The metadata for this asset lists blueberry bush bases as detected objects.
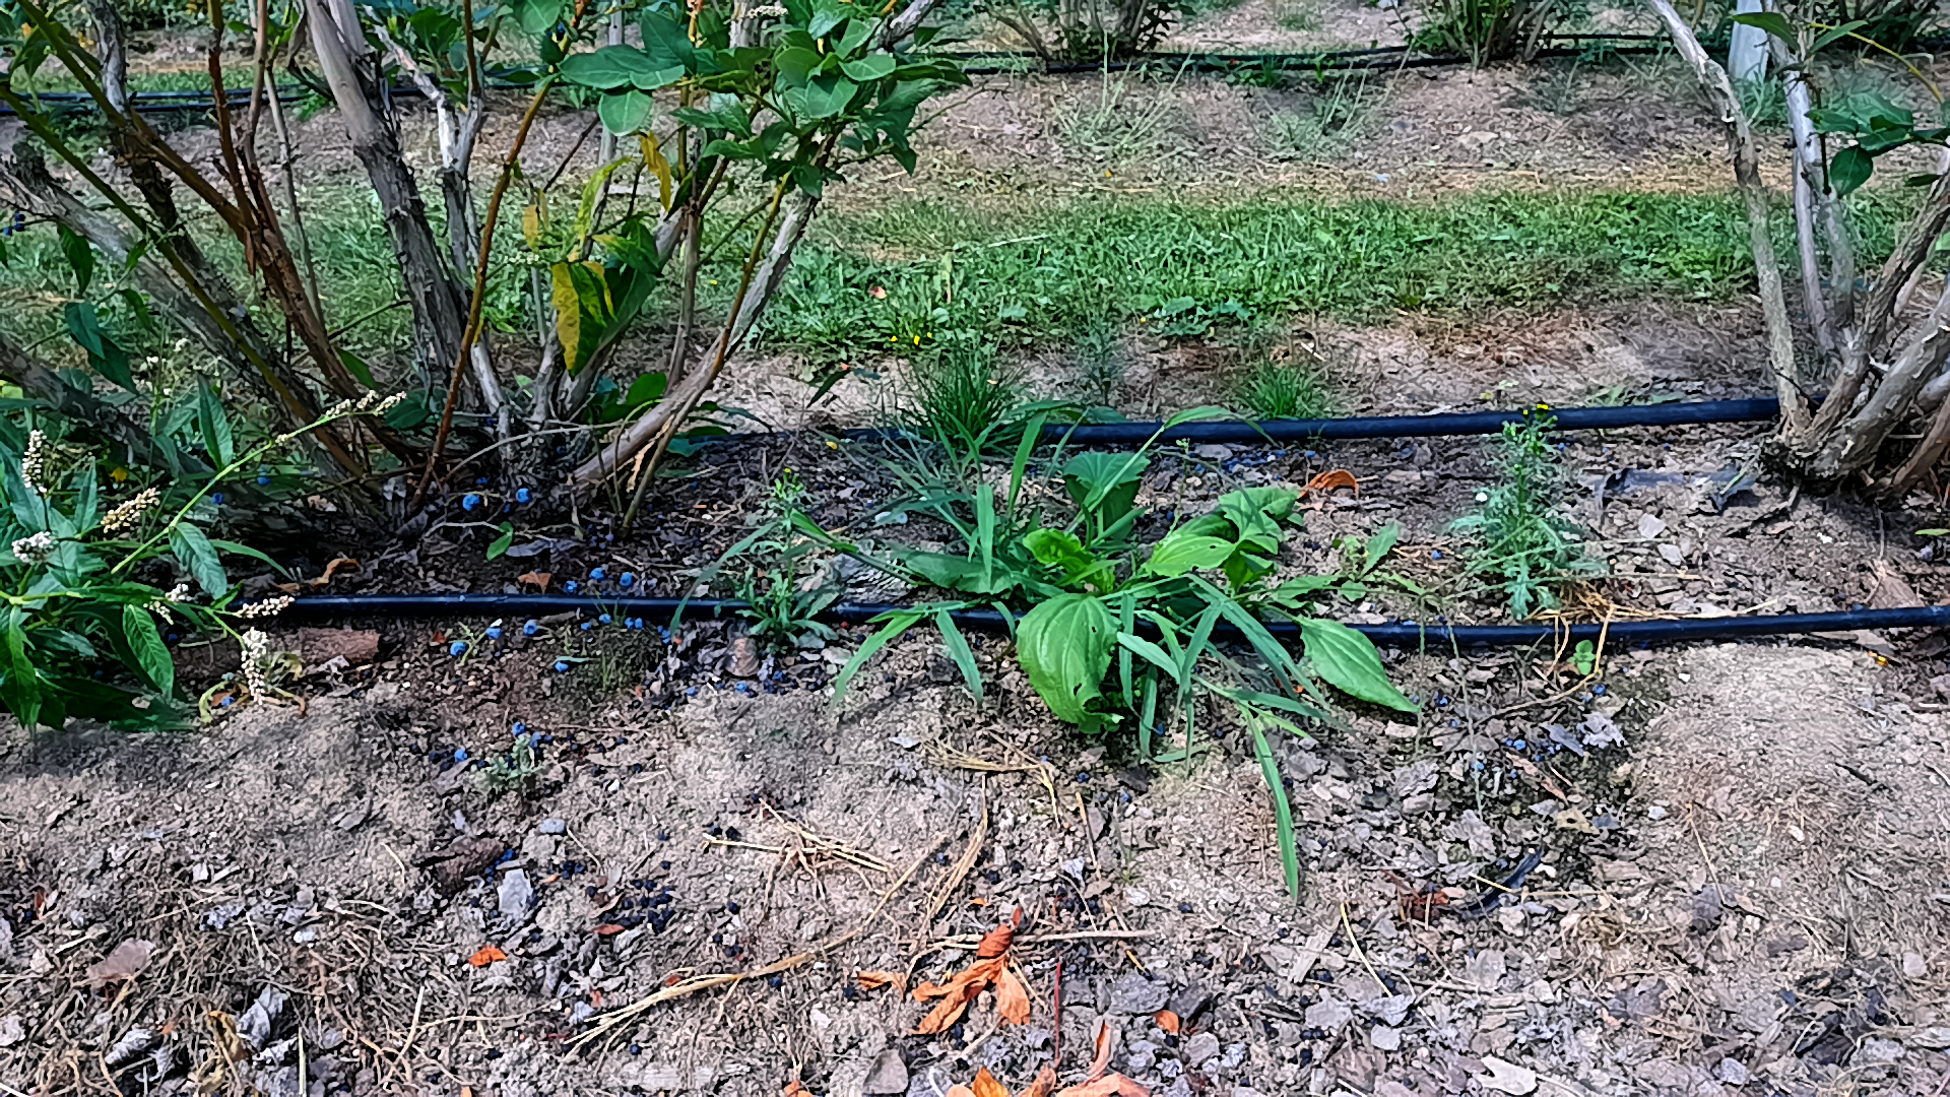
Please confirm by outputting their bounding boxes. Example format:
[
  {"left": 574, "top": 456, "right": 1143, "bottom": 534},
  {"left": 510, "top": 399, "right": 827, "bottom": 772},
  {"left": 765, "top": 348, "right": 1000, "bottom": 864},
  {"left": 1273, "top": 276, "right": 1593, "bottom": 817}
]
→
[
  {"left": 1701, "top": 179, "right": 1950, "bottom": 579},
  {"left": 145, "top": 265, "right": 795, "bottom": 652},
  {"left": 1434, "top": 10, "right": 1561, "bottom": 83},
  {"left": 1022, "top": 15, "right": 1171, "bottom": 100}
]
